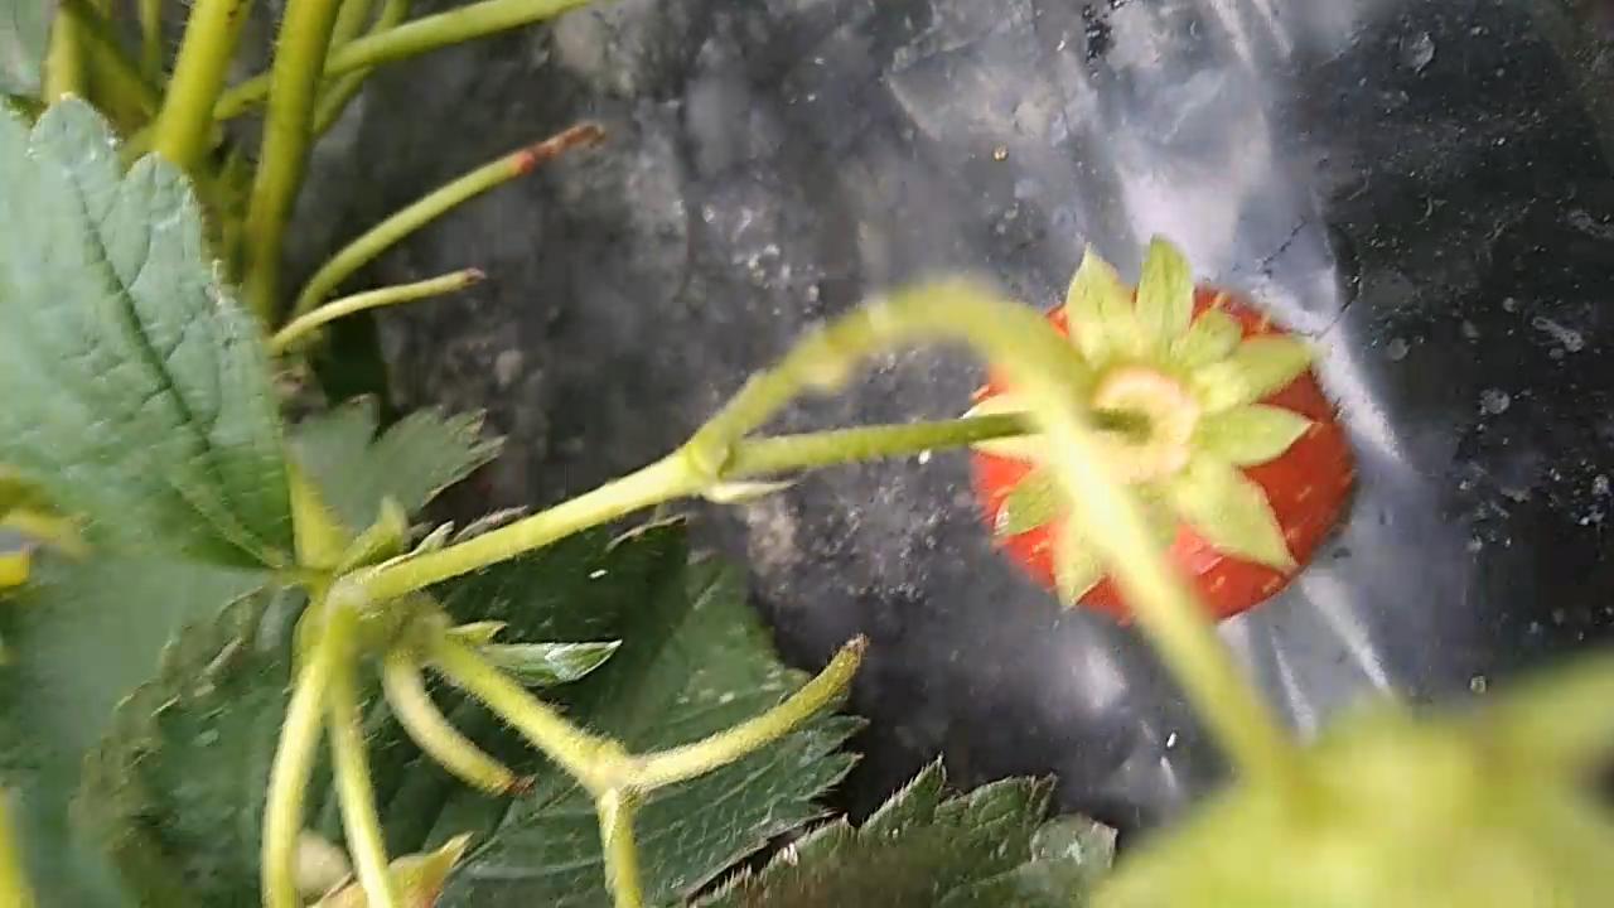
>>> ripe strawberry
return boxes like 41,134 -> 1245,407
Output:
954,272 -> 1400,646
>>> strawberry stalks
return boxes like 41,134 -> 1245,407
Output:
1047,518 -> 1345,832
775,392 -> 1207,480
